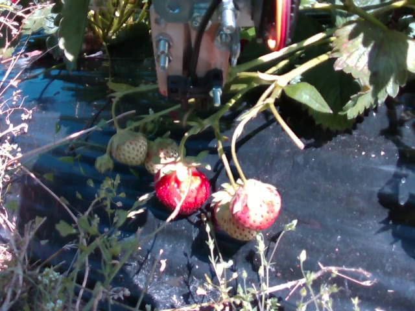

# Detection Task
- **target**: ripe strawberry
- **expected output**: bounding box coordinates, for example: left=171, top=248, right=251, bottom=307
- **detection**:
left=157, top=169, right=208, bottom=211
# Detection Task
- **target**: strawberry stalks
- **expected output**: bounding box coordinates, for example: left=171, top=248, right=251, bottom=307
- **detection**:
left=235, top=125, right=250, bottom=204
left=111, top=92, right=129, bottom=143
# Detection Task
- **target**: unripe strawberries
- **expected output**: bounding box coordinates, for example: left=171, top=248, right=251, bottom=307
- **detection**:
left=144, top=139, right=184, bottom=171
left=216, top=193, right=273, bottom=237
left=111, top=134, right=146, bottom=166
